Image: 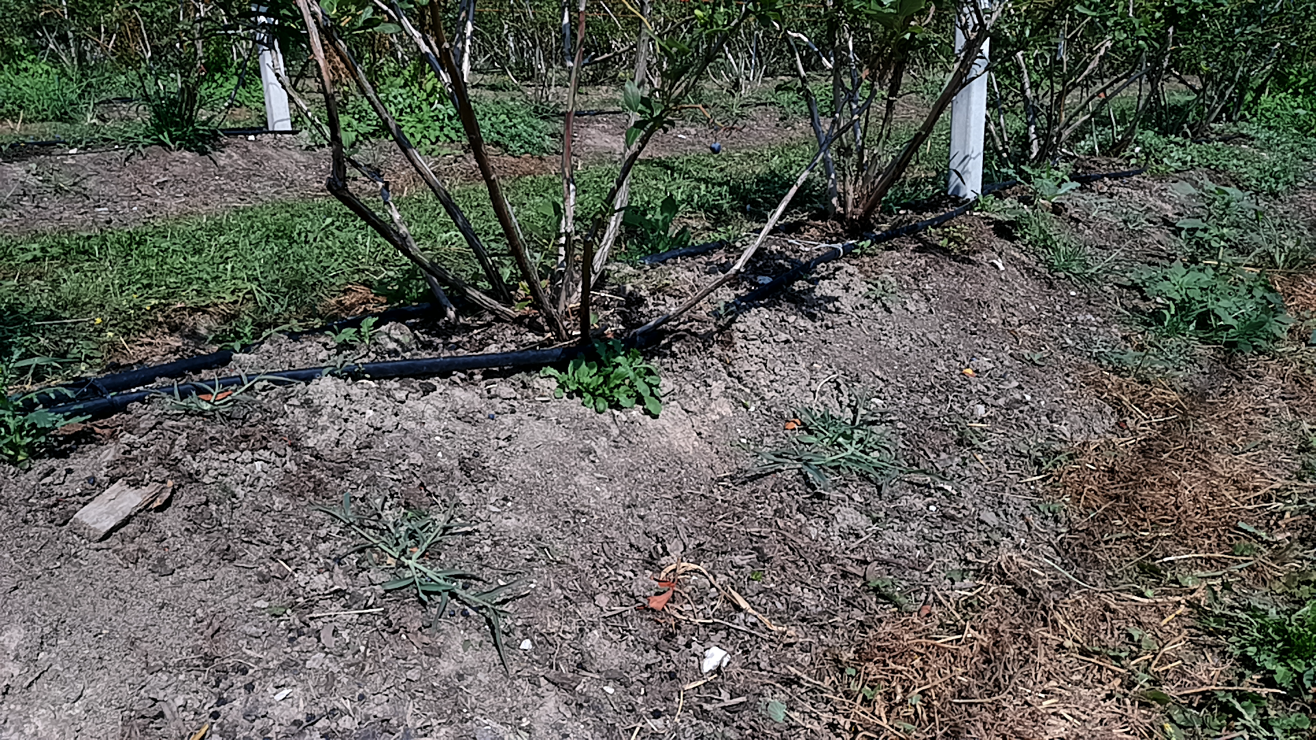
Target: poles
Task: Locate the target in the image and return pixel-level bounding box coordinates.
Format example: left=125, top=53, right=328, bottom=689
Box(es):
left=255, top=33, right=293, bottom=137
left=940, top=12, right=995, bottom=215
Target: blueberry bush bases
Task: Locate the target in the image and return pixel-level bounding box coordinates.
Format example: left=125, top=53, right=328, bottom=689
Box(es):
left=793, top=129, right=927, bottom=256
left=1149, top=77, right=1277, bottom=159
left=132, top=84, right=217, bottom=150
left=1067, top=104, right=1153, bottom=176
left=388, top=201, right=705, bottom=389
left=995, top=99, right=1089, bottom=192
